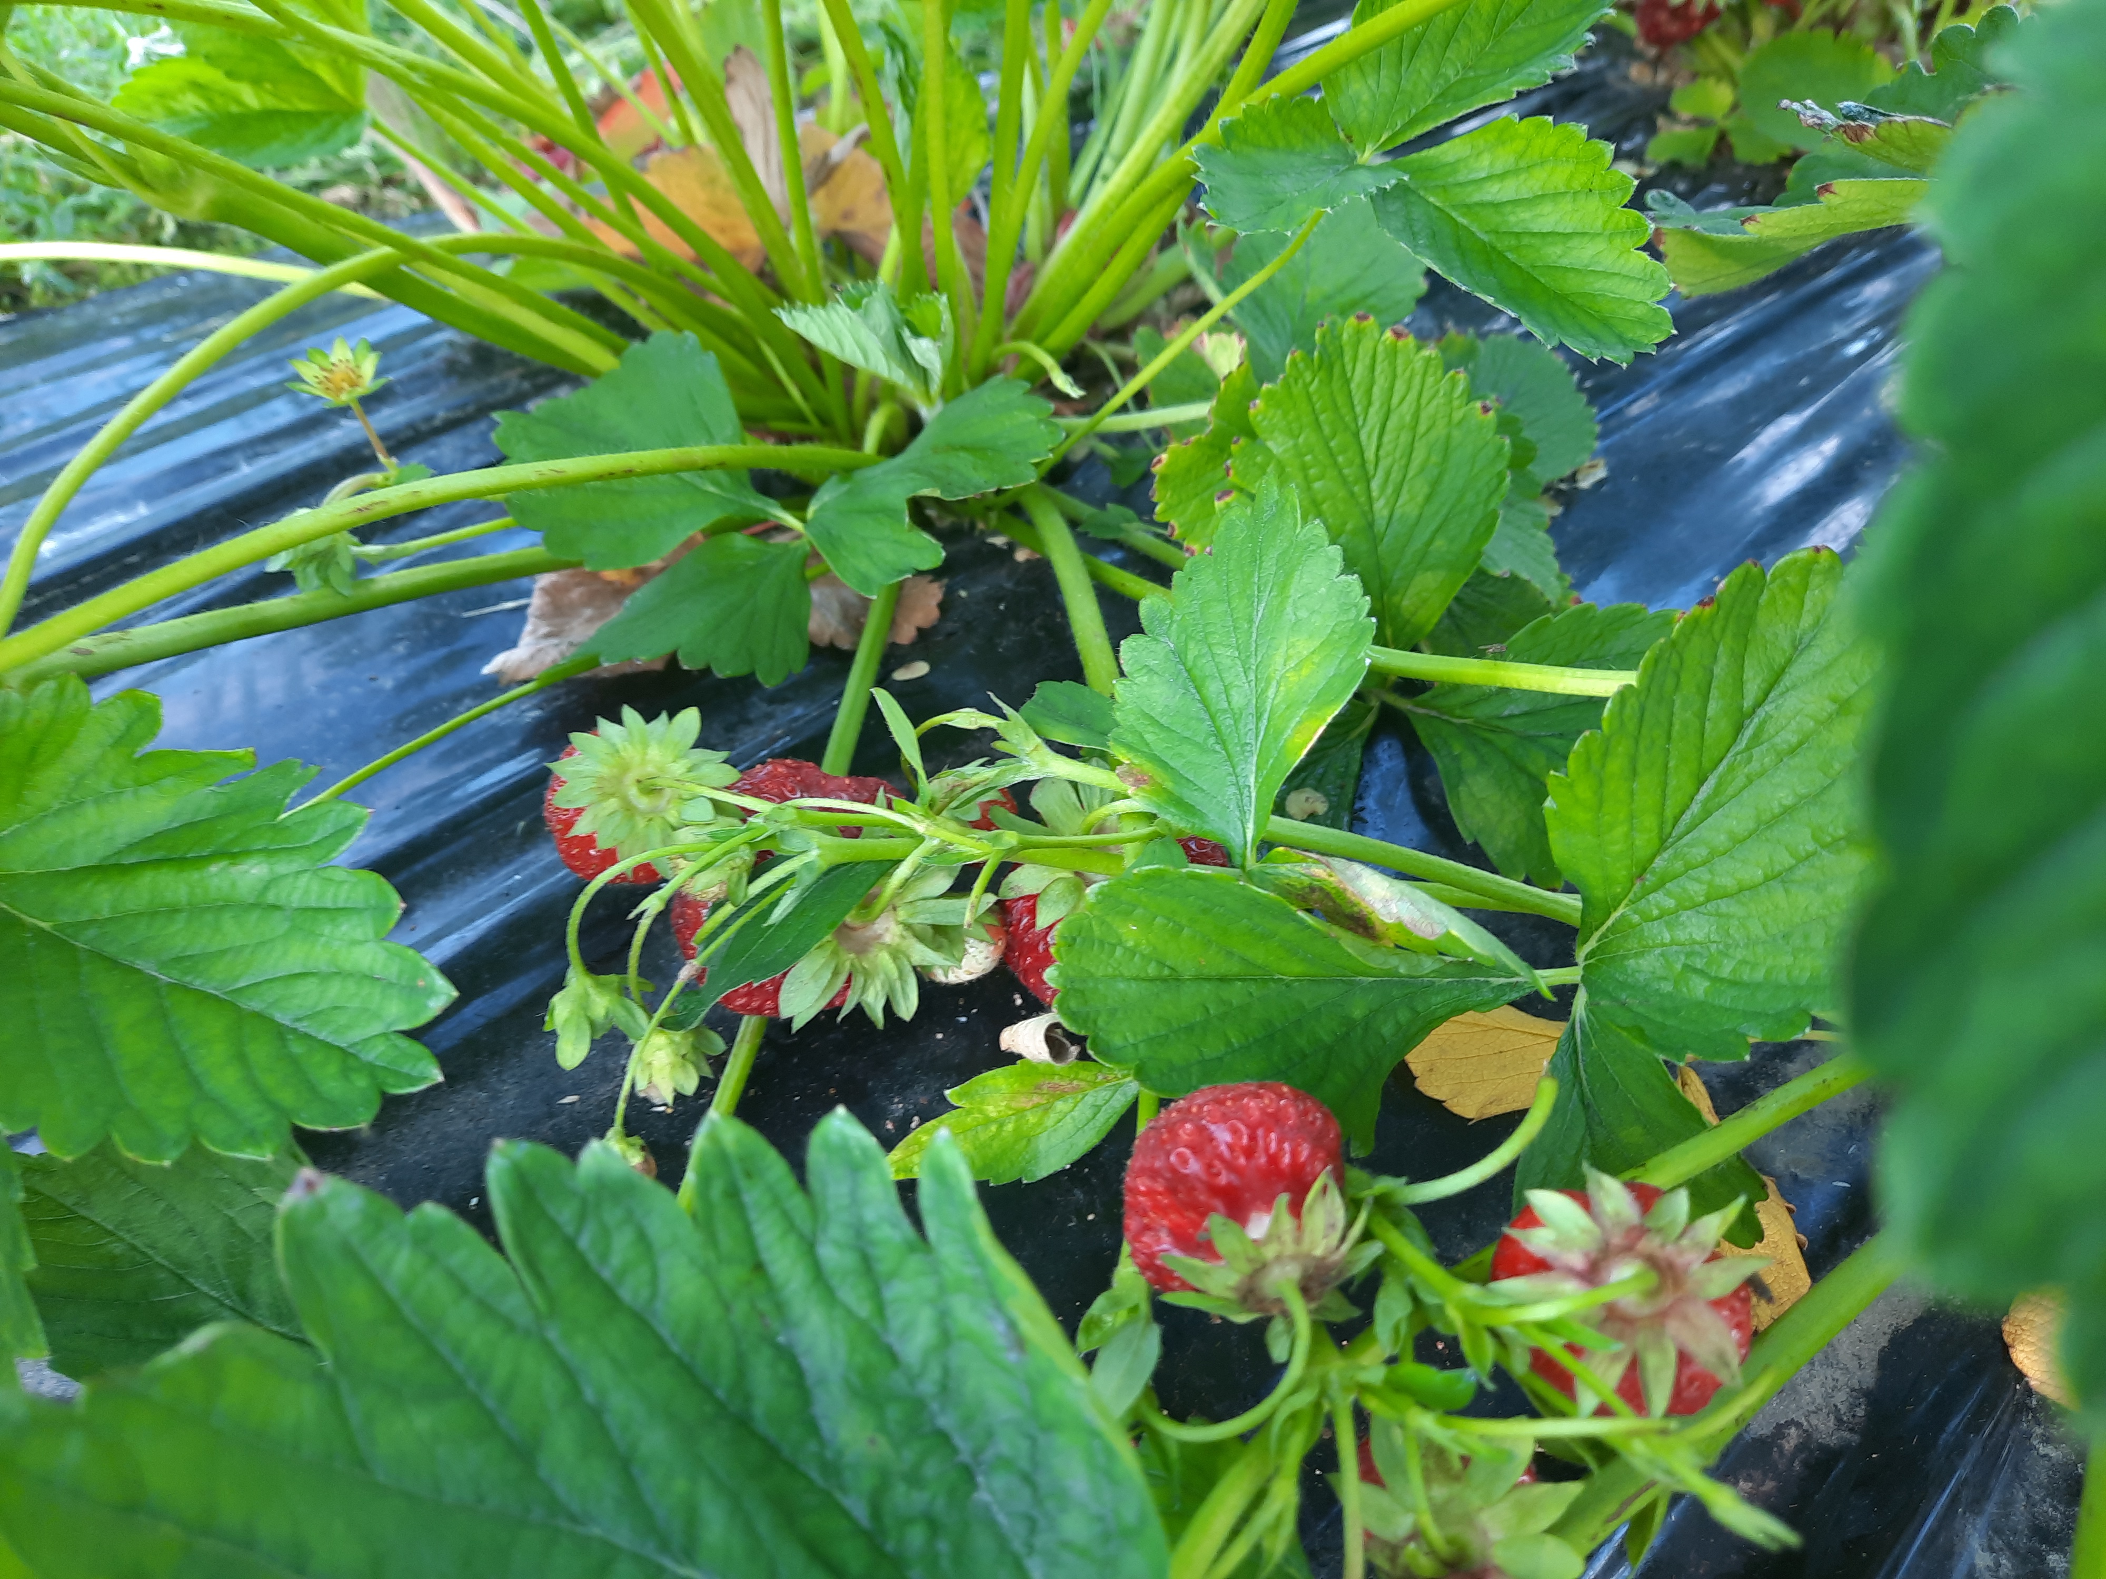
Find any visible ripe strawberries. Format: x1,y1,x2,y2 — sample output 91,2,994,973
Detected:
667,776,919,995
554,739,715,879
1006,758,1245,1013
1131,1096,1356,1300
1490,1191,1777,1397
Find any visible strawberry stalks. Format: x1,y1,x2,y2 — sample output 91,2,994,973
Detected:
1146,1253,1326,1457
1057,787,1181,890
615,773,808,809
1377,1232,1678,1338
805,834,969,941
